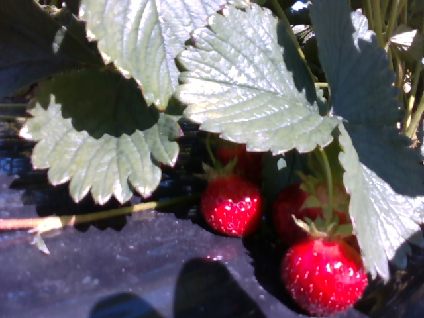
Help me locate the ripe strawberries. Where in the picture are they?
[271,172,360,245]
[205,127,276,173]
[193,178,263,233]
[280,224,373,318]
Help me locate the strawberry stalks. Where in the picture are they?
[314,148,342,261]
[200,128,228,191]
